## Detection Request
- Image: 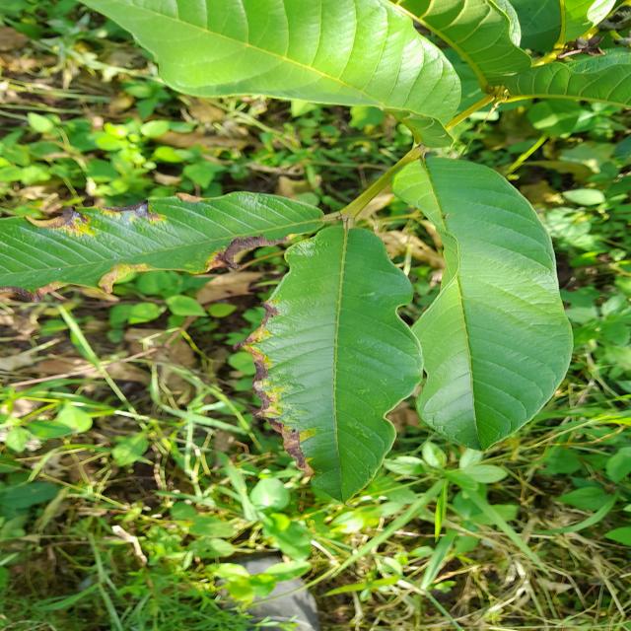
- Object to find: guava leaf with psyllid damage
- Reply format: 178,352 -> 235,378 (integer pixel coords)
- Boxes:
250,213 -> 440,523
